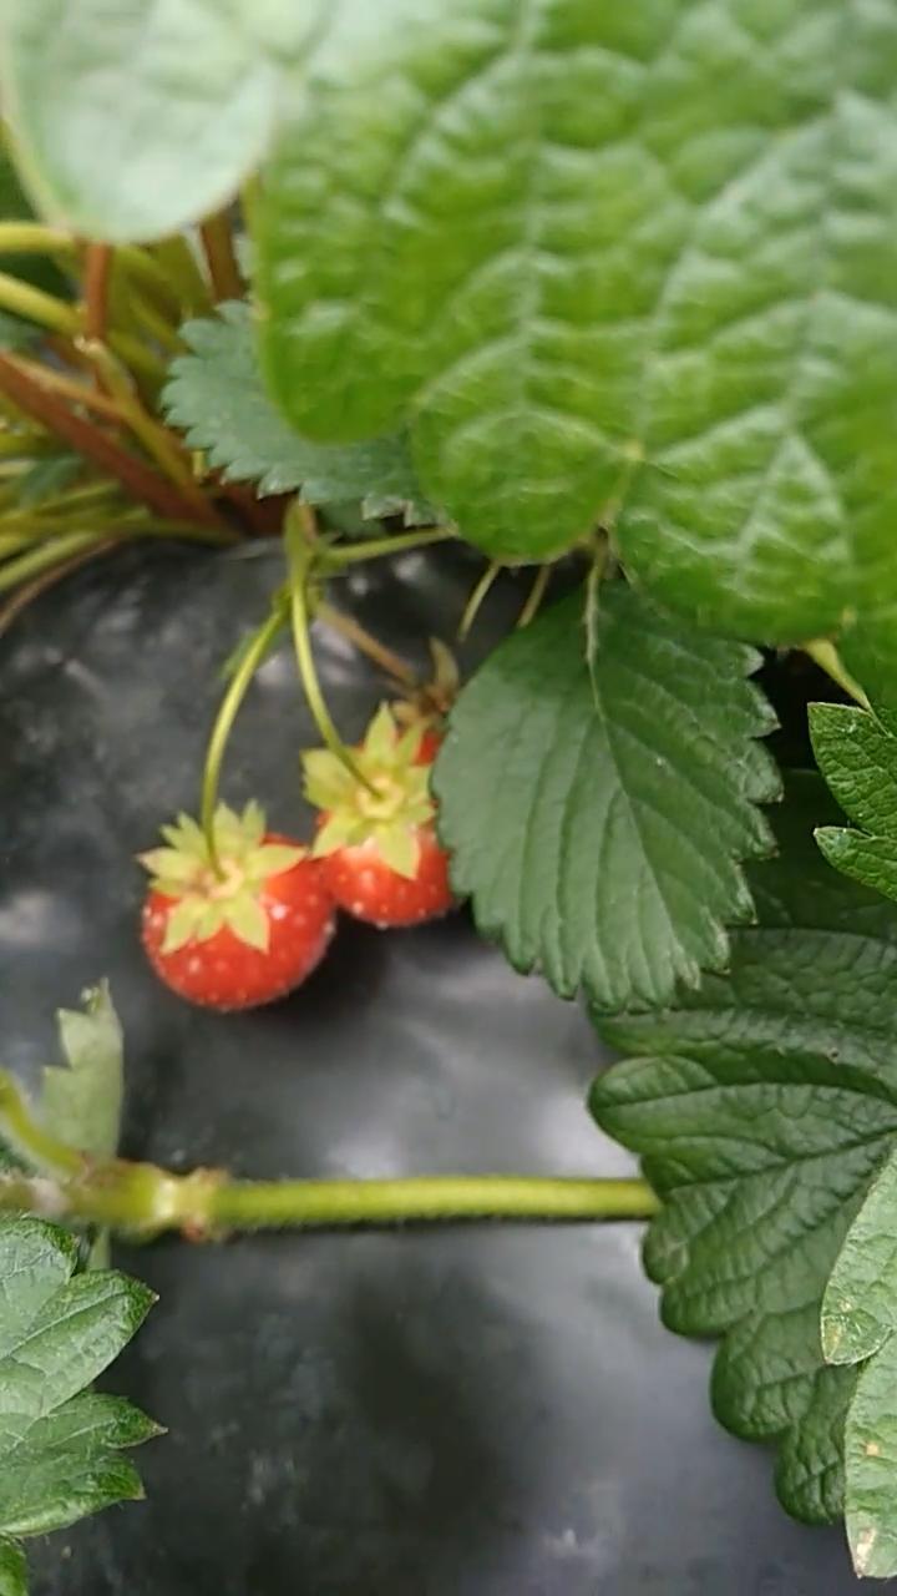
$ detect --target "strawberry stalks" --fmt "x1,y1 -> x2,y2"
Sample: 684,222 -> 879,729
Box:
279,612 -> 427,854
180,722 -> 234,910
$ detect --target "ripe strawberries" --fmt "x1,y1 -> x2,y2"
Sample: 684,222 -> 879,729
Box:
303,729 -> 495,936
133,819 -> 336,1012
